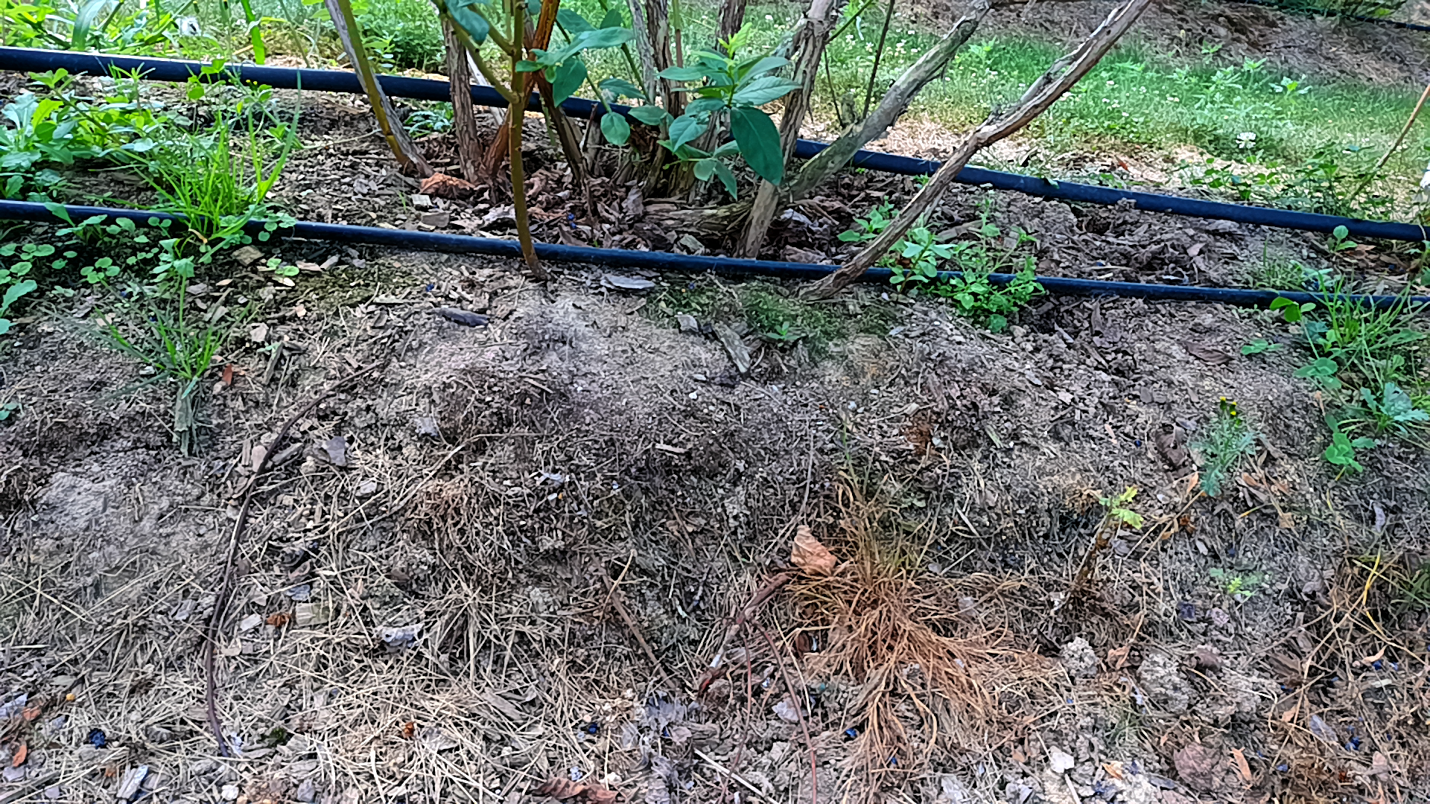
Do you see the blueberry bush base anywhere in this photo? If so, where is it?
[325,18,938,335]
